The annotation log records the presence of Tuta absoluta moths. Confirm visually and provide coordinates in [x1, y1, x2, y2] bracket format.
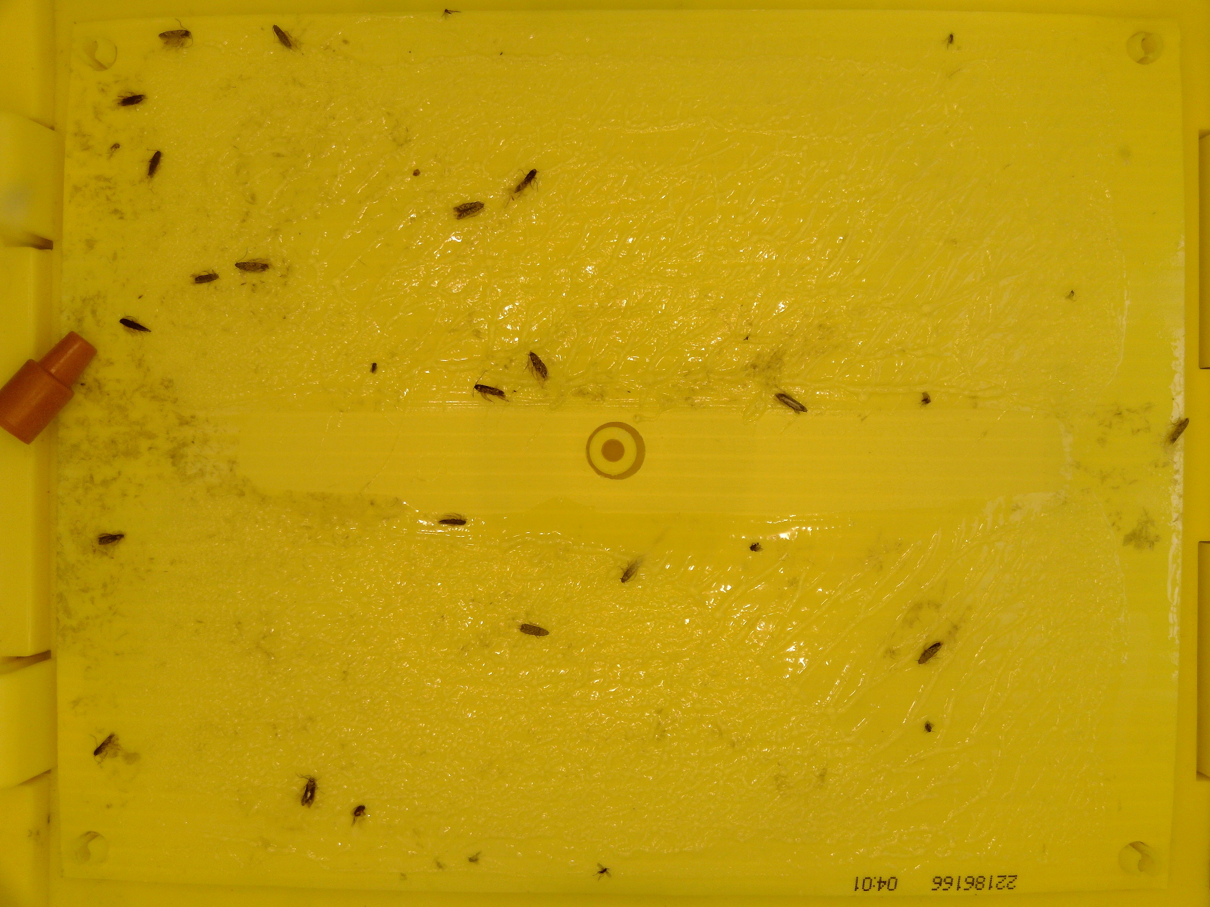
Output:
[436, 515, 470, 528]
[146, 149, 162, 178]
[118, 315, 151, 334]
[157, 22, 192, 50]
[300, 777, 317, 807]
[526, 350, 548, 383]
[619, 556, 642, 583]
[518, 621, 548, 637]
[774, 391, 807, 414]
[92, 731, 122, 763]
[192, 270, 219, 285]
[97, 531, 124, 546]
[118, 91, 145, 107]
[512, 167, 538, 197]
[474, 382, 505, 401]
[234, 258, 270, 273]
[1167, 415, 1193, 448]
[453, 200, 484, 219]
[272, 24, 301, 53]
[917, 640, 942, 665]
